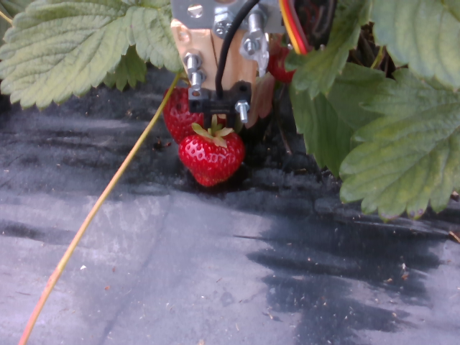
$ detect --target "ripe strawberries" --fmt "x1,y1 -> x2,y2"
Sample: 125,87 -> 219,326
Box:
163,87 -> 219,145
267,33 -> 311,86
179,130 -> 247,192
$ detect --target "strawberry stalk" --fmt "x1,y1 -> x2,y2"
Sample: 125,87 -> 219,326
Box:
198,109 -> 224,145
